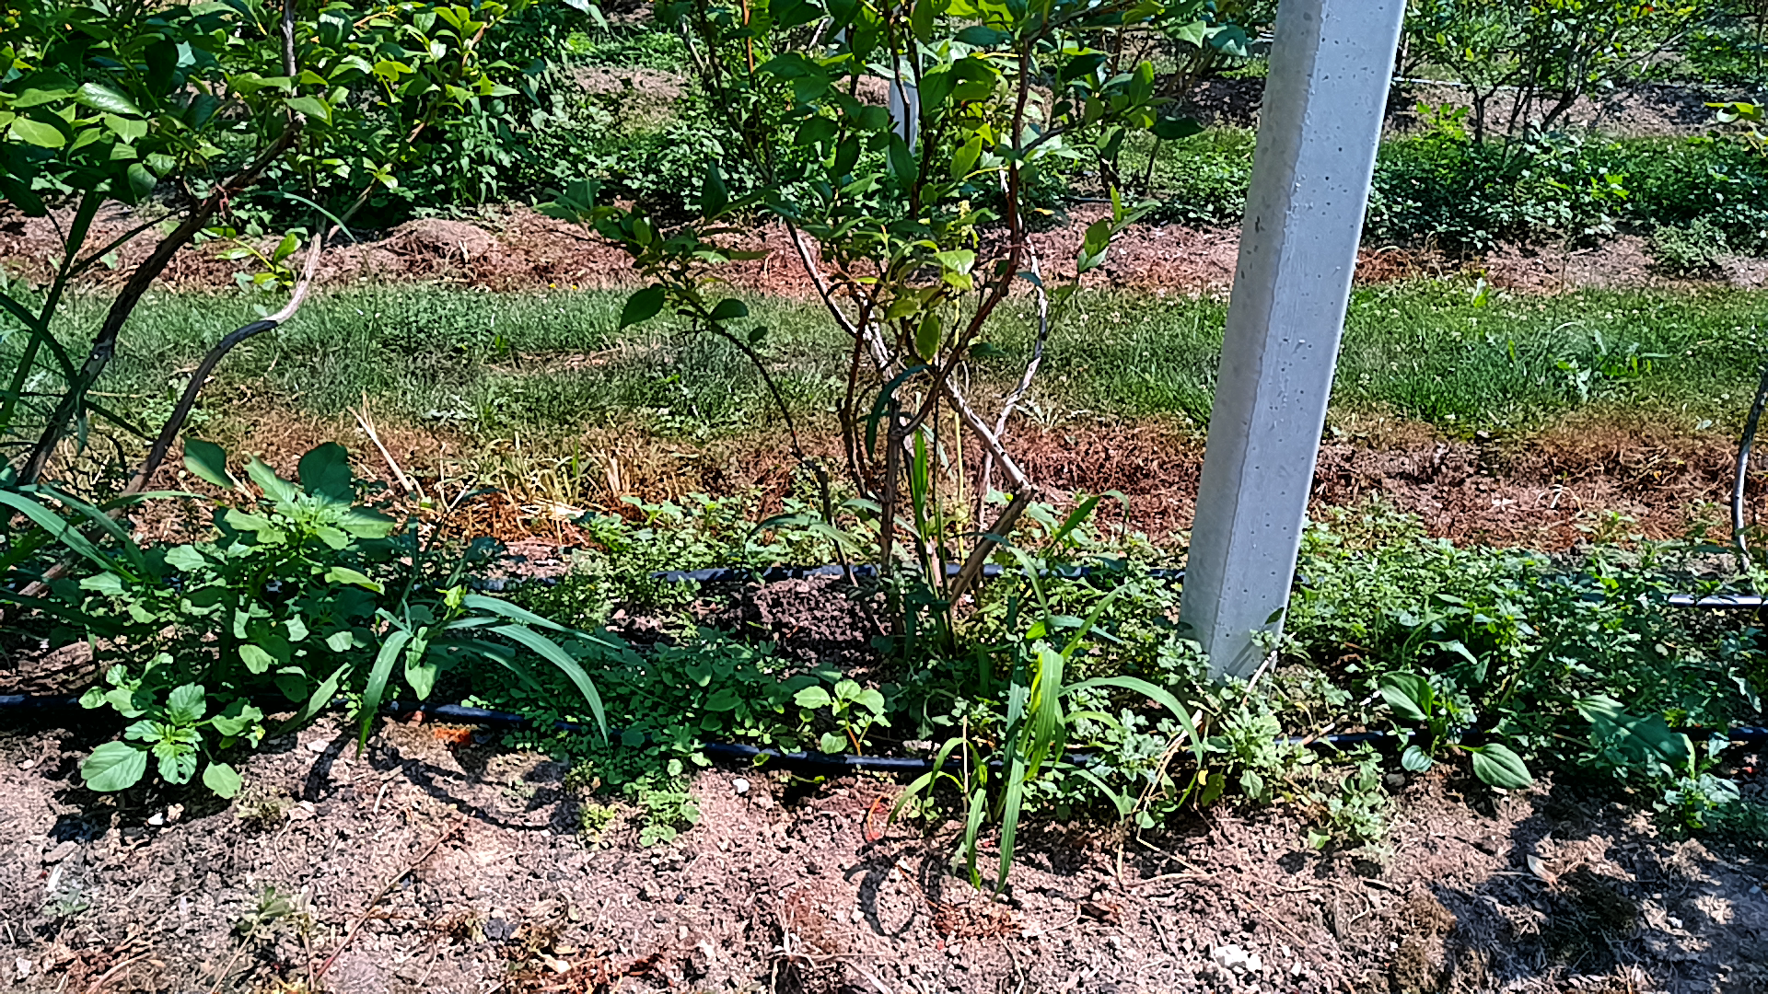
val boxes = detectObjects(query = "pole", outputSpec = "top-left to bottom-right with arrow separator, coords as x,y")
1154,2 -> 1423,760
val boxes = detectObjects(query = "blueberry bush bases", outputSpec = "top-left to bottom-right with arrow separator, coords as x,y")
0,432 -> 148,716
743,378 -> 1084,772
